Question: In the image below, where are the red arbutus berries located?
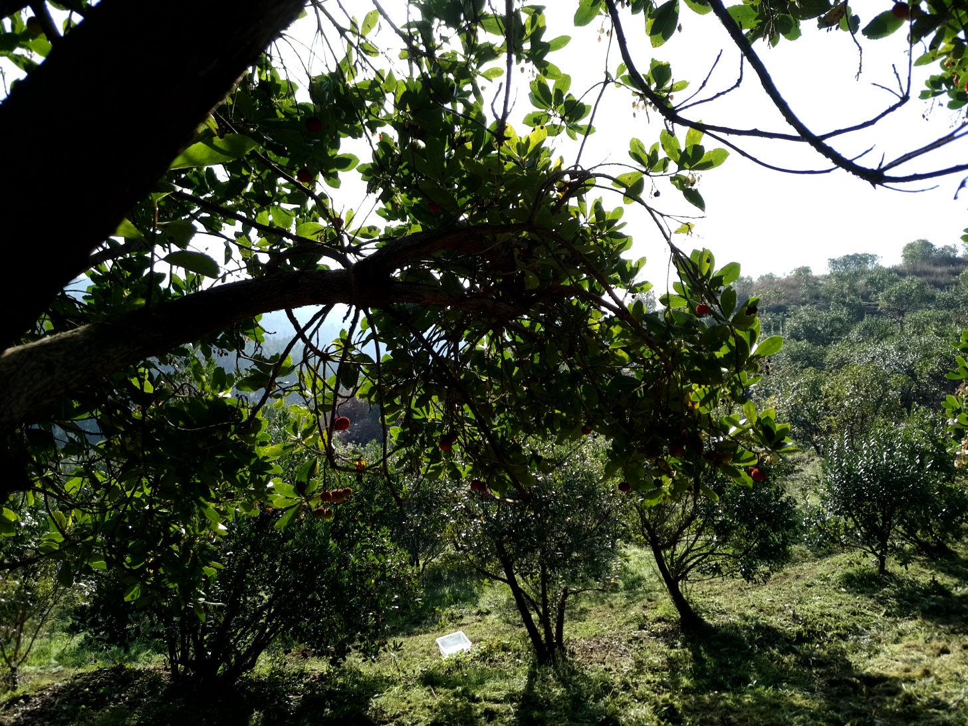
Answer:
[297,167,313,183]
[439,438,452,451]
[581,425,592,434]
[618,481,630,492]
[320,490,333,502]
[471,479,481,490]
[752,467,766,481]
[428,201,440,212]
[336,417,350,431]
[696,303,709,315]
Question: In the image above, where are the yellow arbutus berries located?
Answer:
[330,488,346,504]
[323,508,333,519]
[314,506,325,518]
[342,487,353,497]
[355,460,367,469]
